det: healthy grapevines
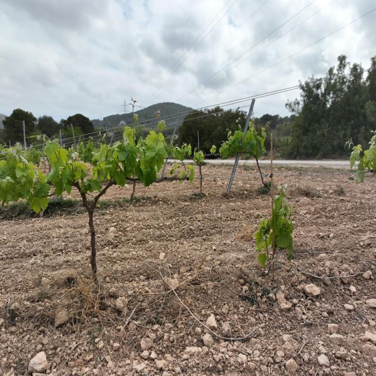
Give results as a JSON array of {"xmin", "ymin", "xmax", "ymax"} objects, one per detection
[
  {"xmin": 0, "ymin": 121, "xmax": 207, "ymax": 293},
  {"xmin": 253, "ymin": 179, "xmax": 297, "ymax": 292}
]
